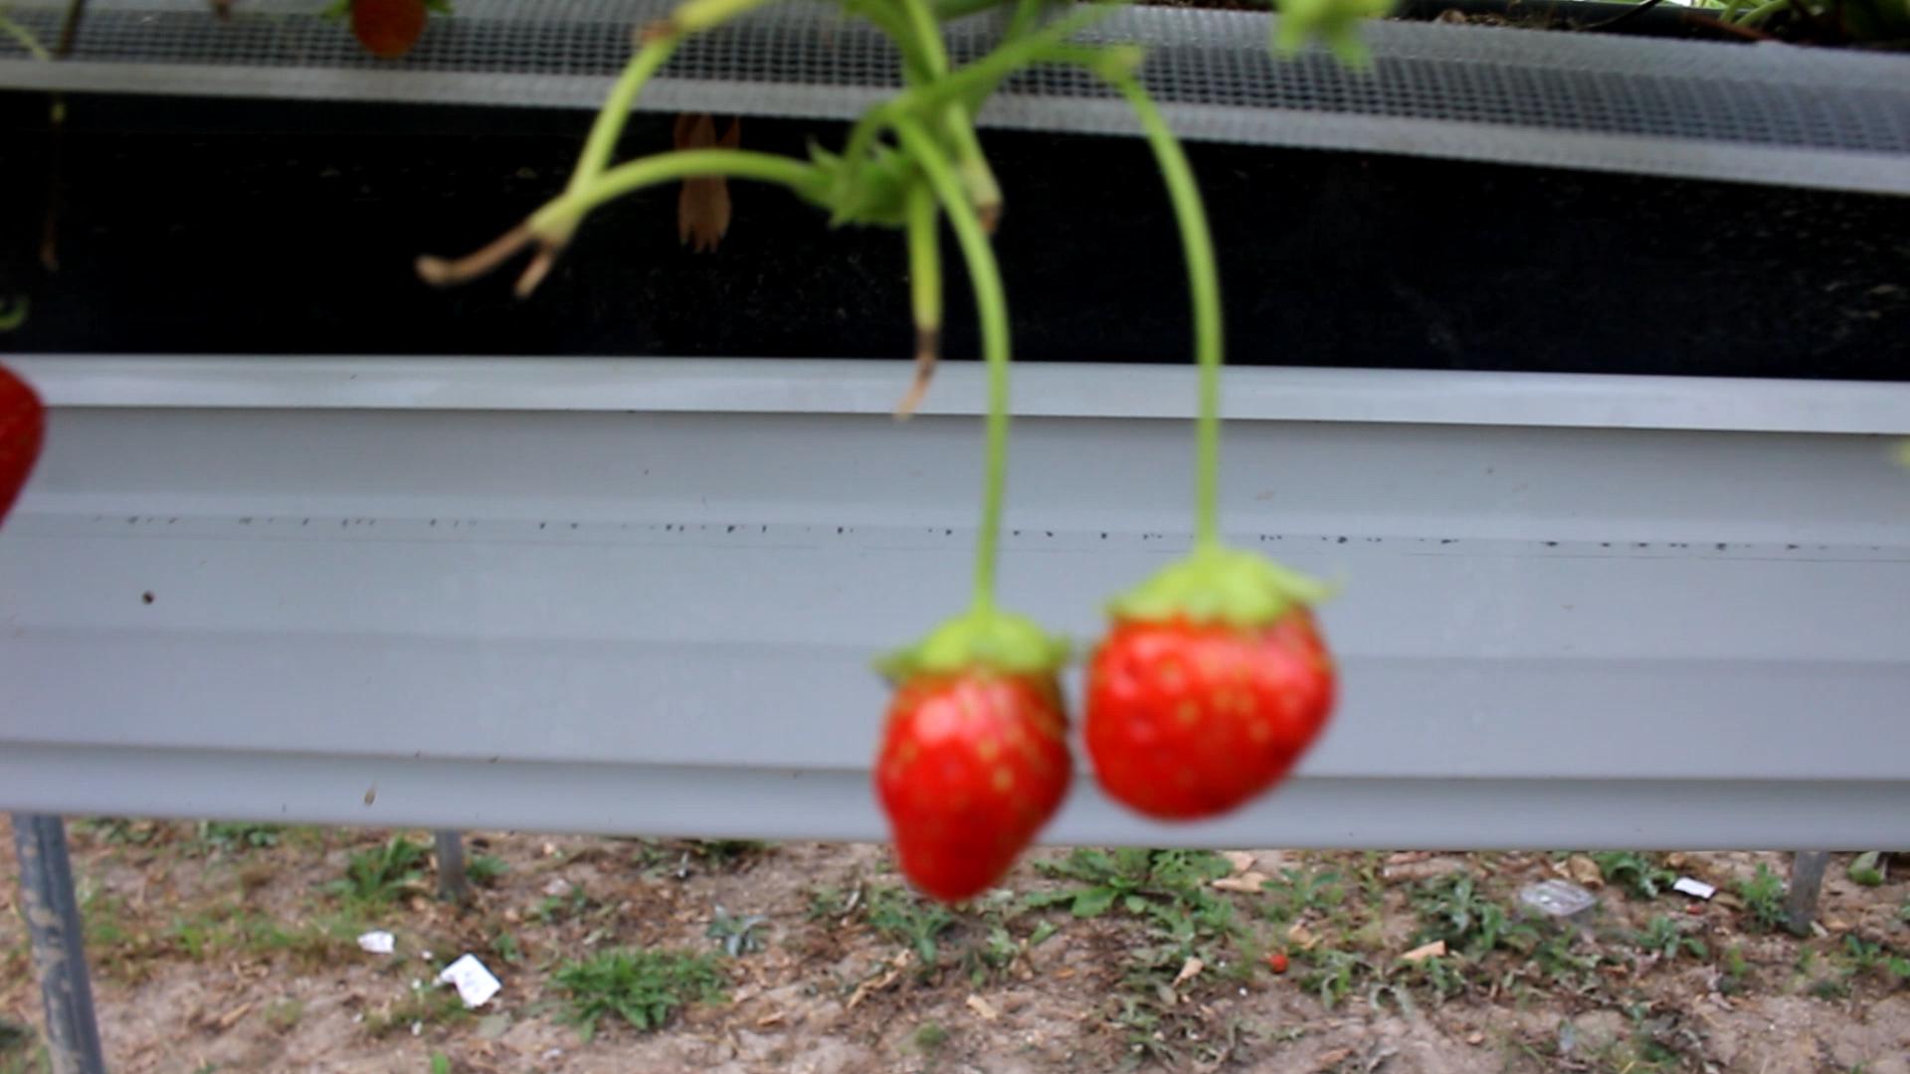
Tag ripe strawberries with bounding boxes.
[1067,578,1331,835]
[843,616,1102,914]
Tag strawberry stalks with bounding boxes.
[1176,252,1228,611]
[955,371,1040,653]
